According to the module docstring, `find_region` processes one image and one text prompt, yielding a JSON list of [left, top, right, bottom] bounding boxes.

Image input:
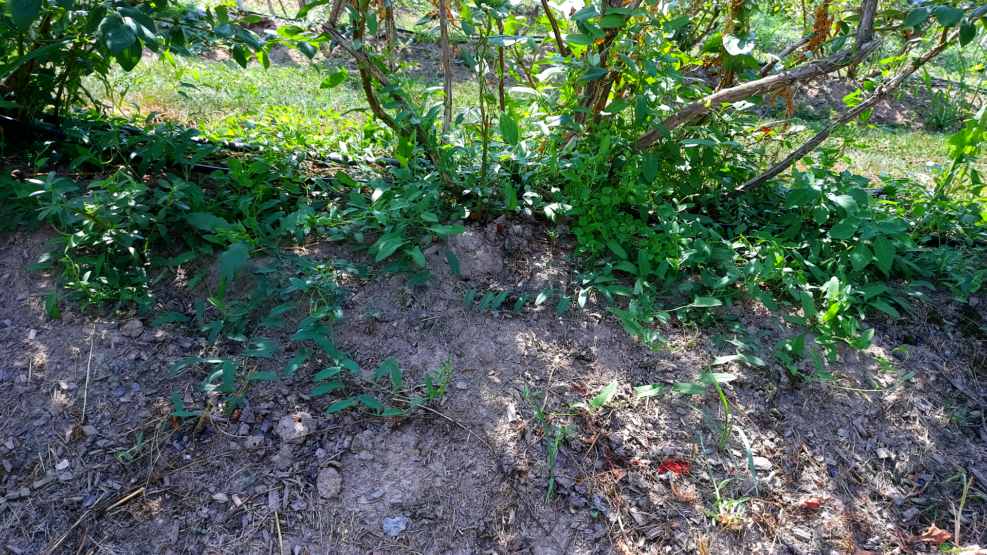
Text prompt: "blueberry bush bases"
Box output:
[[412, 90, 780, 298], [0, 24, 91, 204]]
